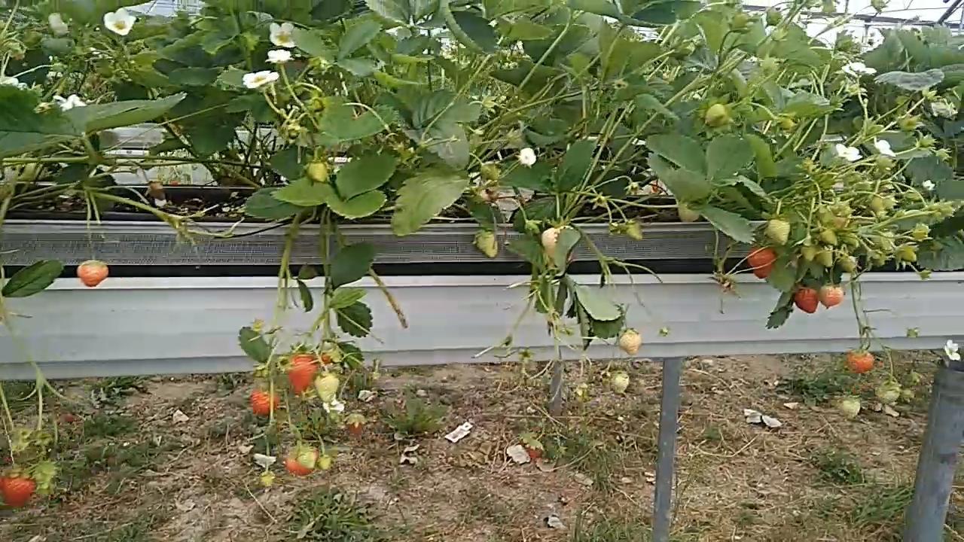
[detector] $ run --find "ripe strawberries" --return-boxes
[0,471,39,510]
[846,346,876,374]
[253,393,276,417]
[285,443,316,477]
[746,248,774,278]
[795,285,818,317]
[288,354,319,394]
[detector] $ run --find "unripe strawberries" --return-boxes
[876,384,898,407]
[838,395,862,420]
[764,219,792,246]
[617,330,642,356]
[622,221,644,242]
[259,473,277,496]
[75,263,109,289]
[317,377,342,403]
[820,283,845,311]
[303,163,330,182]
[472,231,496,260]
[609,372,630,396]
[316,456,334,473]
